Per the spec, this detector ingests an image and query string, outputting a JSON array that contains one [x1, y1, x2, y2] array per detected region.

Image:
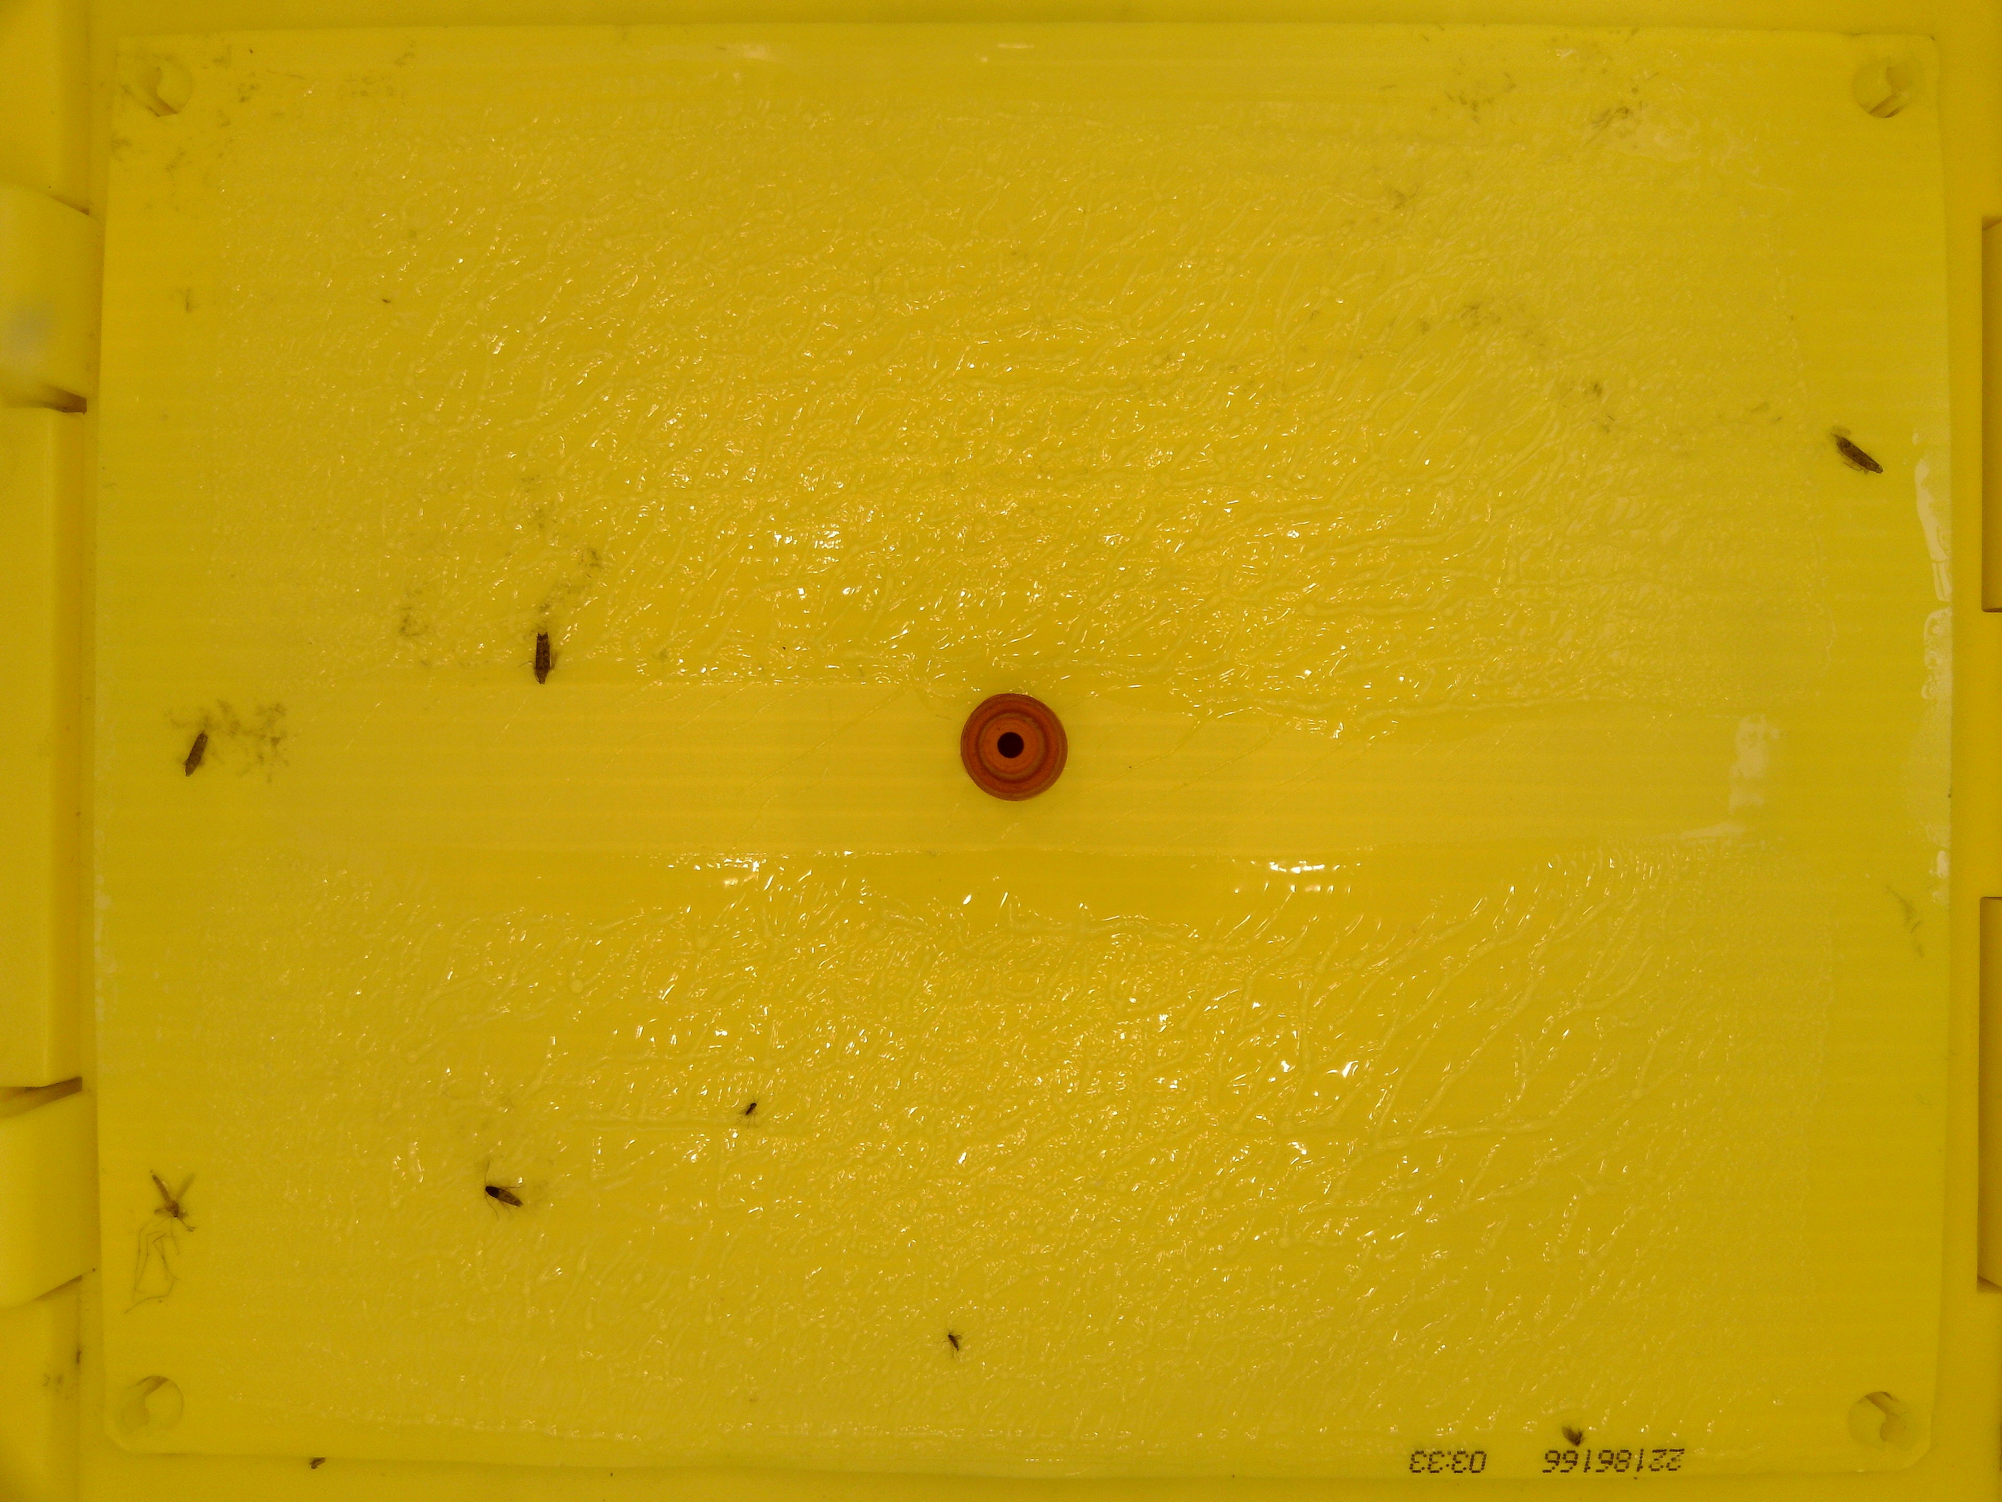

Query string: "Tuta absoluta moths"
[[531, 628, 554, 683], [182, 729, 210, 776], [1833, 430, 1882, 475]]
